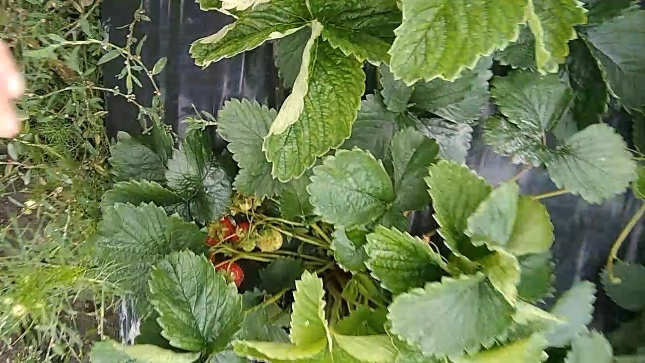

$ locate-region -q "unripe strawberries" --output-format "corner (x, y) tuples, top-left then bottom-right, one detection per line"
(242, 235), (259, 256)
(260, 227), (285, 252)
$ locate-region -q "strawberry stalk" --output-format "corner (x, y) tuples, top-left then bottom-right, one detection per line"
(225, 257), (238, 276)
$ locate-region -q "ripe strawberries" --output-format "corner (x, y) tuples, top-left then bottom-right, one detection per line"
(204, 213), (231, 249)
(234, 220), (252, 246)
(218, 261), (250, 291)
